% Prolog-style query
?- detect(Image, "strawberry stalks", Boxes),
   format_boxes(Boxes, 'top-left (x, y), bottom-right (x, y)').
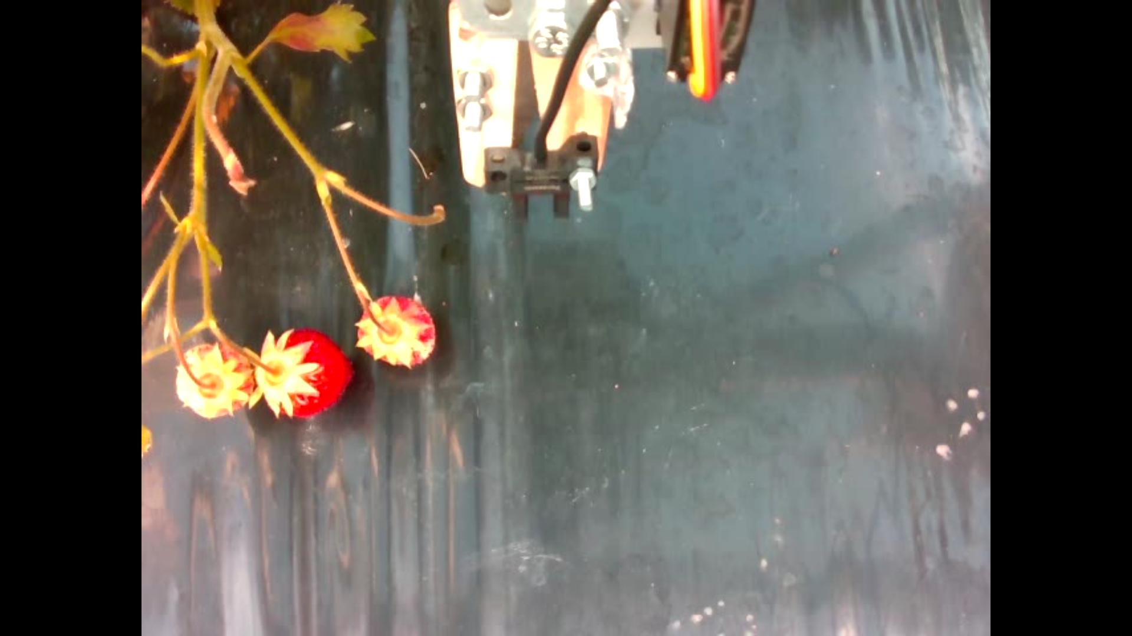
top-left (343, 275), bottom-right (395, 339)
top-left (223, 335), bottom-right (280, 375)
top-left (169, 329), bottom-right (202, 384)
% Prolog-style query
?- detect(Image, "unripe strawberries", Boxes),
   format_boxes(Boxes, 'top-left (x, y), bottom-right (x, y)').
top-left (349, 294), bottom-right (437, 370)
top-left (177, 347), bottom-right (256, 420)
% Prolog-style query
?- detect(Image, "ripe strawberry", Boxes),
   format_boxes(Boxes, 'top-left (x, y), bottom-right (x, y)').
top-left (260, 329), bottom-right (352, 423)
